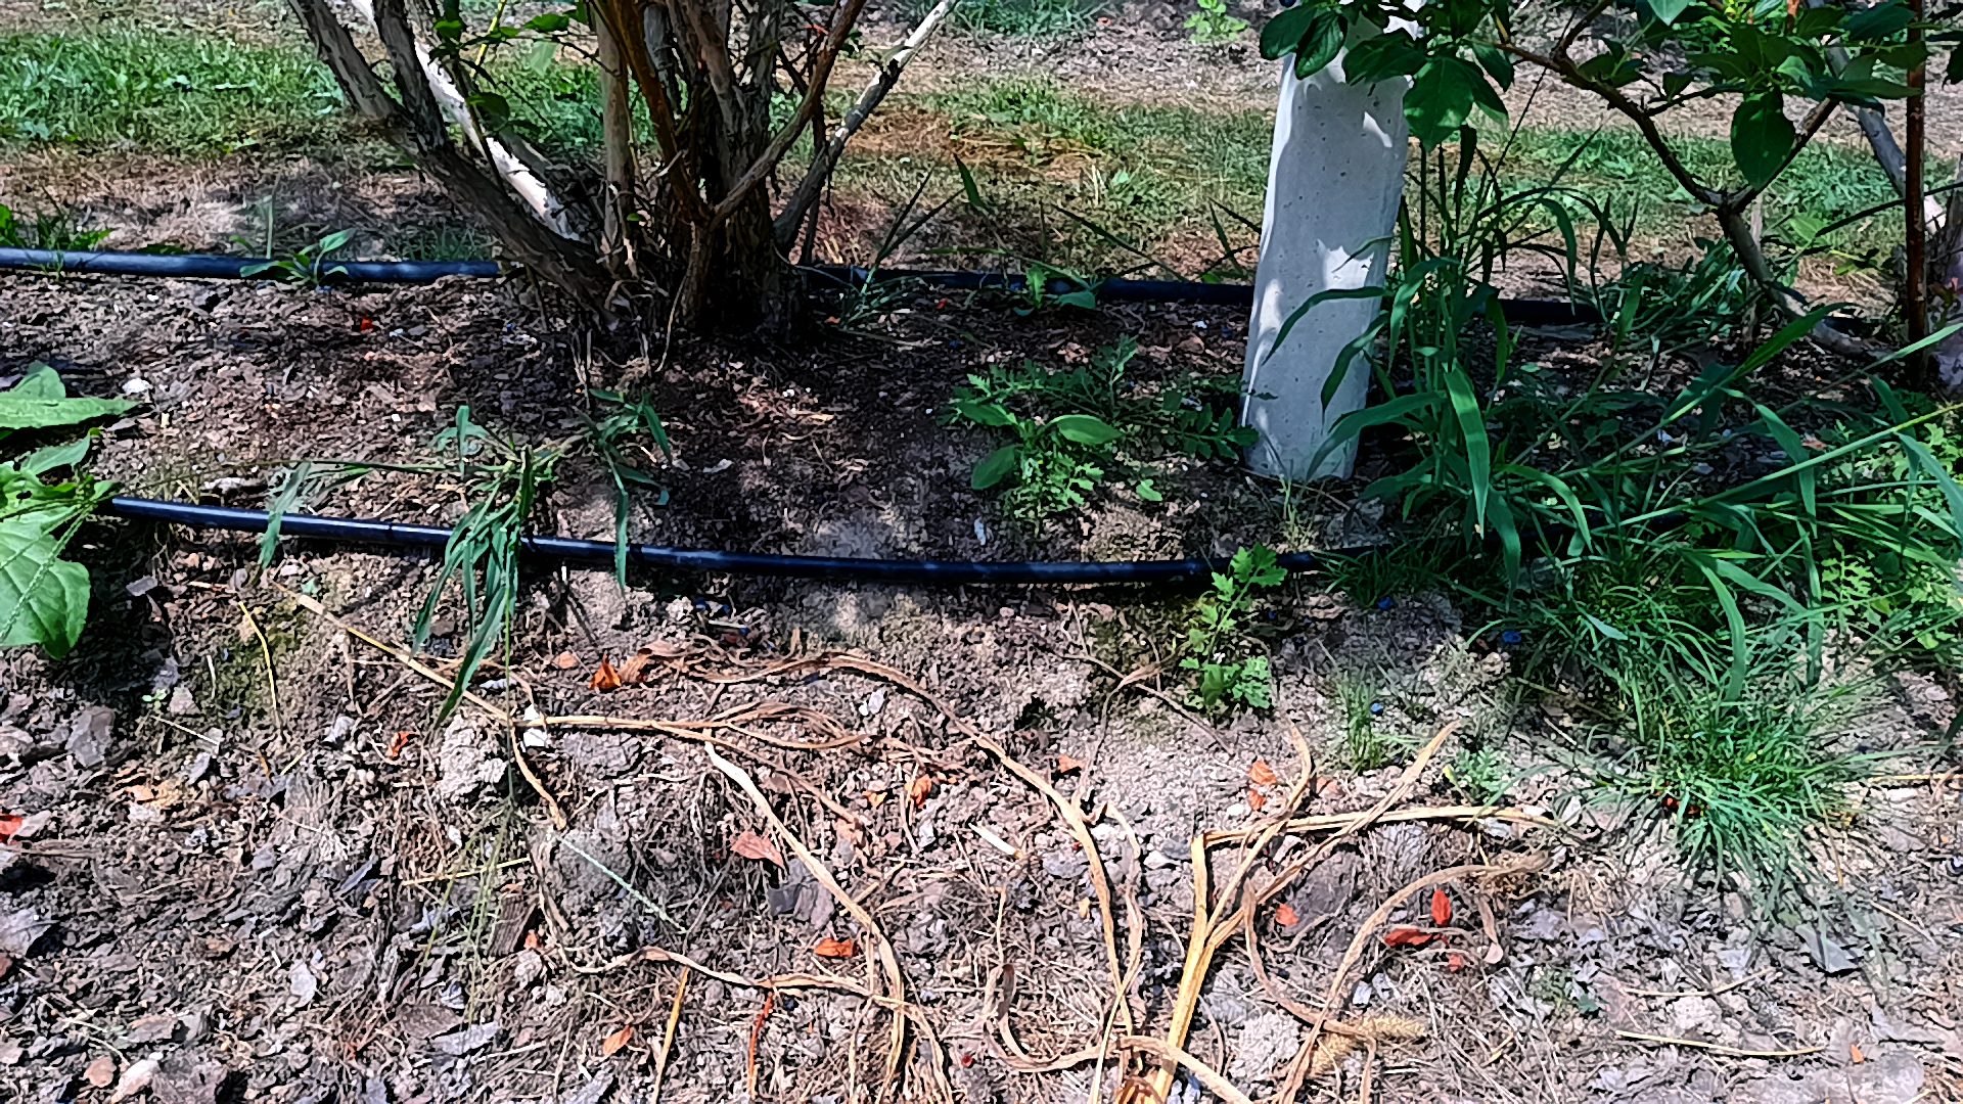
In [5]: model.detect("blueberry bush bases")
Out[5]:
[400,36,888,441]
[1655,178,1962,408]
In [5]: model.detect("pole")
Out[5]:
[1223,77,1419,489]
